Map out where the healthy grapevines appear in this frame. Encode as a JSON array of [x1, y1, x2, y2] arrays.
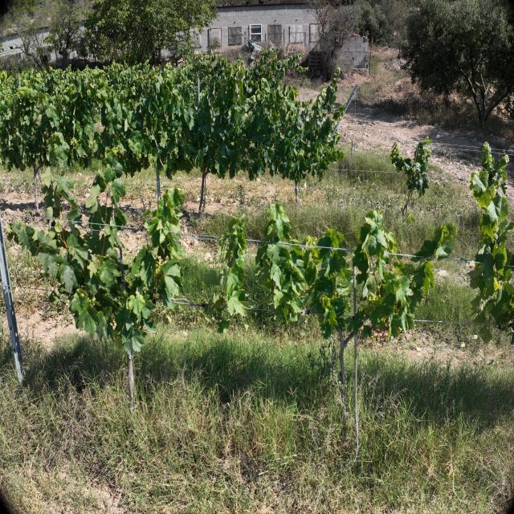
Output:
[[22, 168, 246, 424], [255, 198, 455, 414]]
